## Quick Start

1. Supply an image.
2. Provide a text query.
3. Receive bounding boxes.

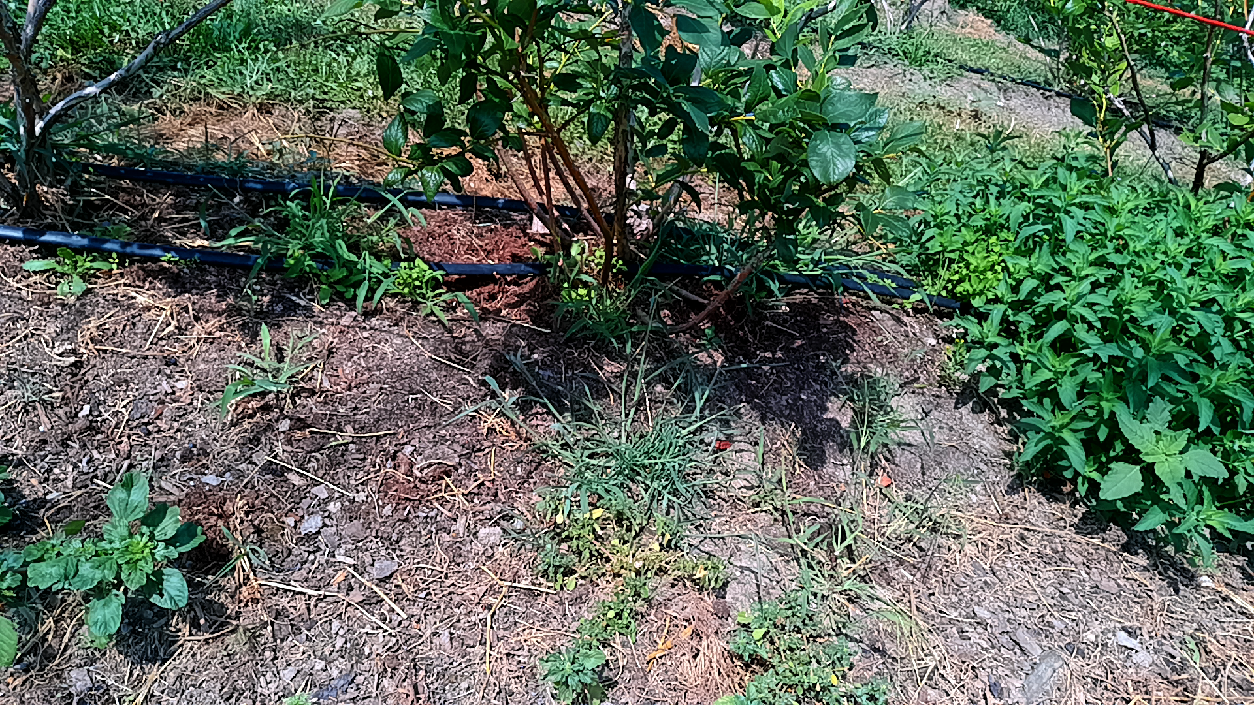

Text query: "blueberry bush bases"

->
[1092,88,1254,313]
[460,106,715,345]
[1,74,88,247]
